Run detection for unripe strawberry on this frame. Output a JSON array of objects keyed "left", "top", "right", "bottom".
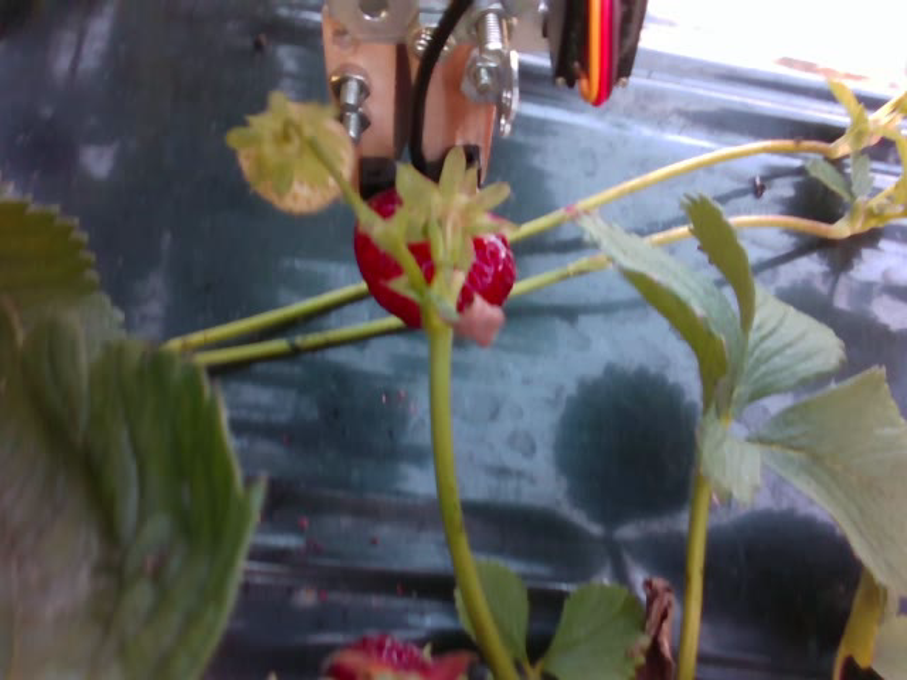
[{"left": 228, "top": 98, "right": 362, "bottom": 220}]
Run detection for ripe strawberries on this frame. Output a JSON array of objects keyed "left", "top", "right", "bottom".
[
  {"left": 357, "top": 192, "right": 517, "bottom": 320},
  {"left": 327, "top": 633, "right": 471, "bottom": 680}
]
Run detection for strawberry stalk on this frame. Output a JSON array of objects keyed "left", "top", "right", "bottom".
[{"left": 277, "top": 115, "right": 342, "bottom": 174}]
